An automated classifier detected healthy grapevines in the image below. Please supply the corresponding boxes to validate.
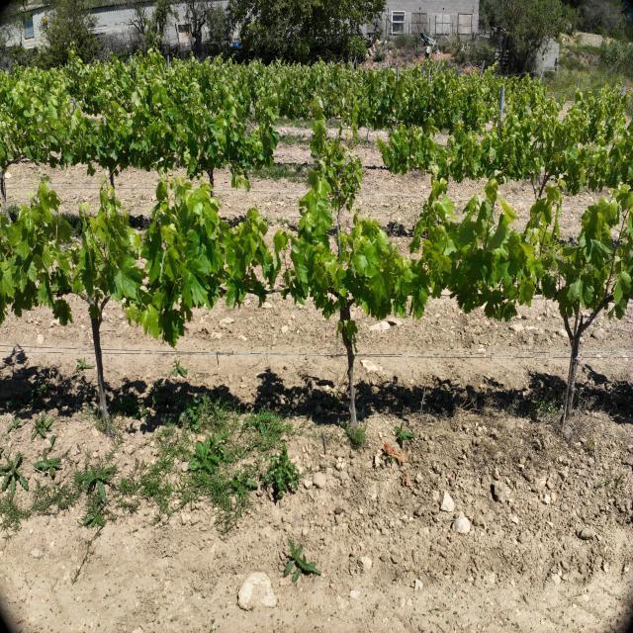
[206,175,481,449]
[0,163,224,438]
[452,176,633,445]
